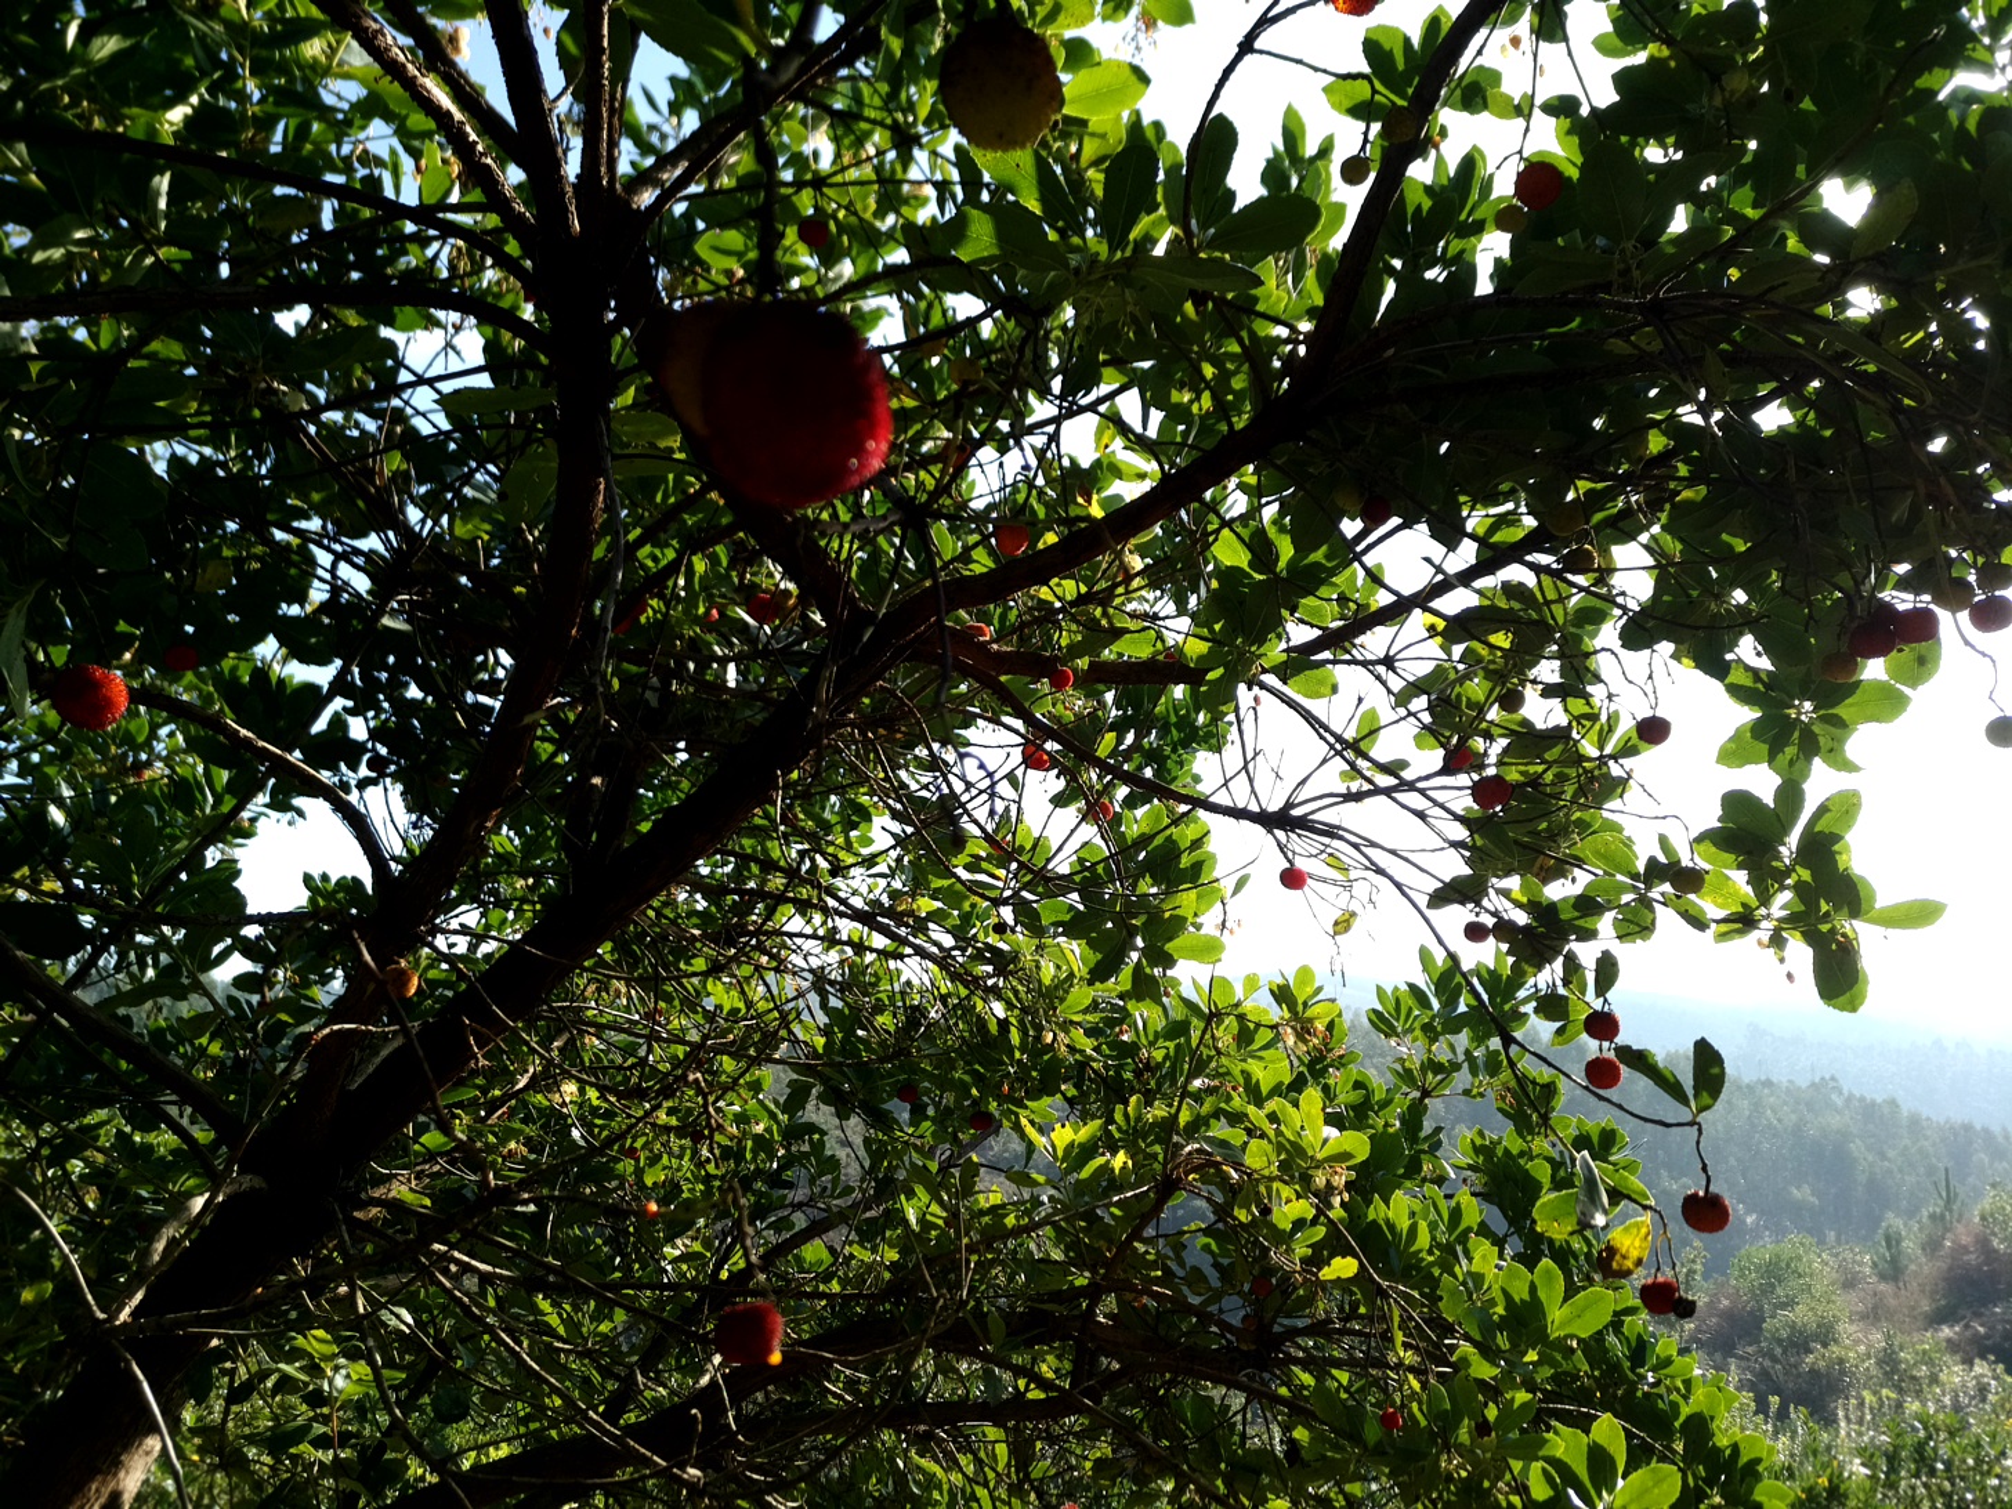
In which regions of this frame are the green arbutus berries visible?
[1381,103,1419,145]
[1500,687,1526,713]
[776,588,795,607]
[1934,572,1975,615]
[1671,864,1706,893]
[1818,648,1859,683]
[950,353,984,386]
[1562,543,1598,571]
[1492,918,1525,946]
[1545,500,1586,534]
[1493,204,1527,233]
[1339,153,1372,188]
[1985,716,2012,748]
[1332,480,1367,514]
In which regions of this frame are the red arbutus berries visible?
[1251,1275,1274,1297]
[1279,867,1307,890]
[795,216,830,247]
[1445,745,1475,770]
[896,1082,917,1103]
[1020,744,1051,770]
[1849,619,1896,660]
[1361,495,1394,531]
[1681,1187,1731,1235]
[962,619,994,644]
[1380,1407,1404,1430]
[1463,919,1489,942]
[1090,801,1114,821]
[1583,1009,1621,1041]
[1637,715,1672,745]
[998,525,1030,558]
[969,1109,995,1131]
[1051,667,1075,691]
[1584,1056,1623,1088]
[1514,161,1562,207]
[49,666,131,731]
[1893,607,1940,645]
[1970,595,2012,632]
[1471,774,1511,809]
[716,1300,790,1370]
[667,298,895,511]
[1638,1275,1676,1315]
[745,591,776,622]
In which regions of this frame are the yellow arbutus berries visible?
[940,21,1065,146]
[384,965,420,999]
